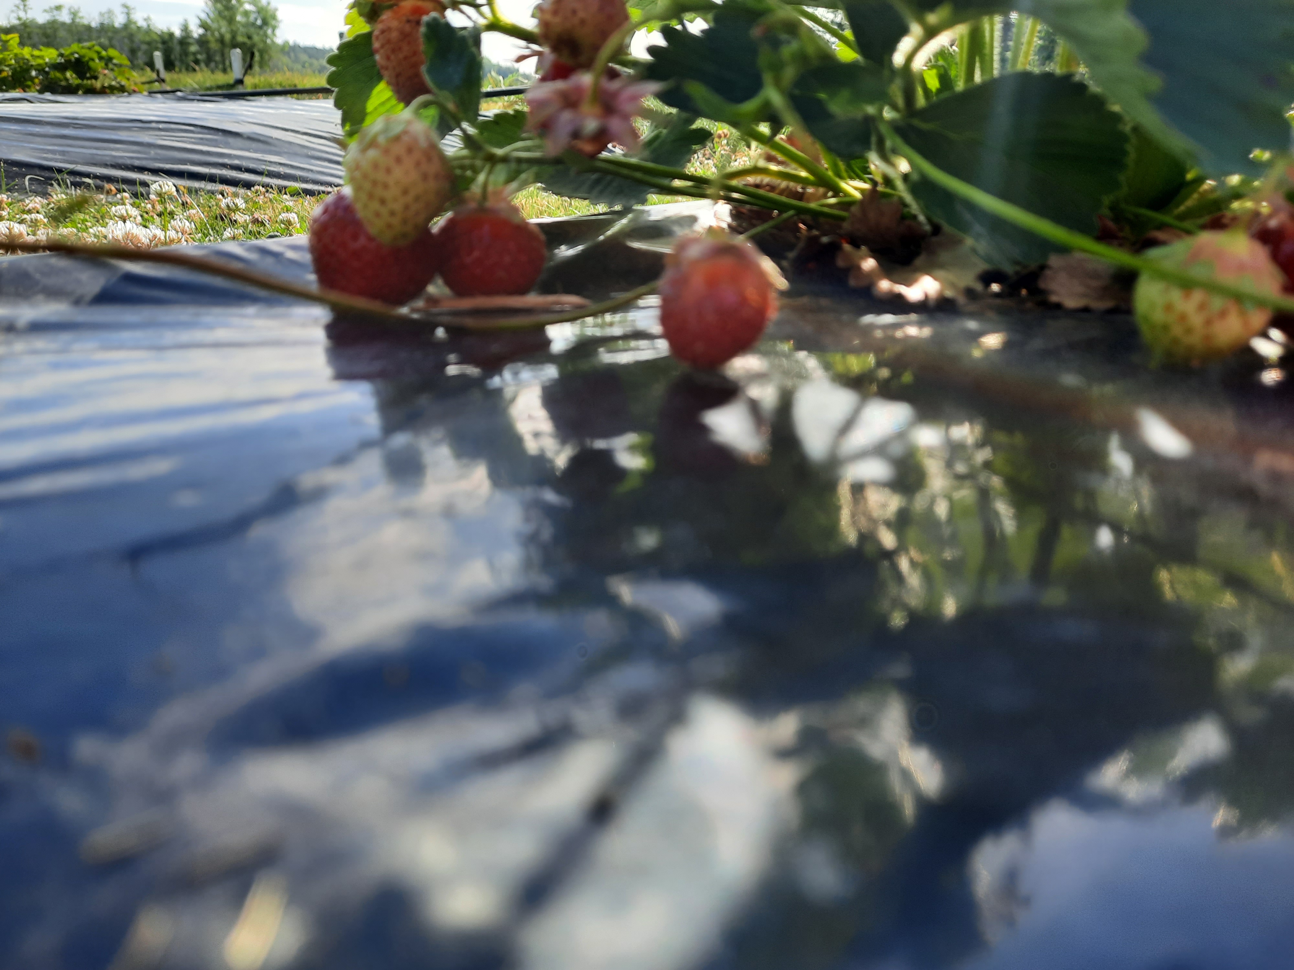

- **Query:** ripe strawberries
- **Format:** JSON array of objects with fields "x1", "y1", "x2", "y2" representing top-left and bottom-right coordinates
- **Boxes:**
[
  {"x1": 320, "y1": 225, "x2": 422, "y2": 305},
  {"x1": 665, "y1": 242, "x2": 769, "y2": 353},
  {"x1": 453, "y1": 224, "x2": 542, "y2": 297}
]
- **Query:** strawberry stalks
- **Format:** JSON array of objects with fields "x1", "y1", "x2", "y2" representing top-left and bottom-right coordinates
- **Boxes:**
[
  {"x1": 713, "y1": 206, "x2": 792, "y2": 259},
  {"x1": 393, "y1": 93, "x2": 468, "y2": 127}
]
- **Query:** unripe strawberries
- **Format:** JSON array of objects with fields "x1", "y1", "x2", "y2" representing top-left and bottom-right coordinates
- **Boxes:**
[
  {"x1": 386, "y1": 2, "x2": 447, "y2": 106},
  {"x1": 1136, "y1": 231, "x2": 1290, "y2": 361},
  {"x1": 347, "y1": 135, "x2": 456, "y2": 226}
]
